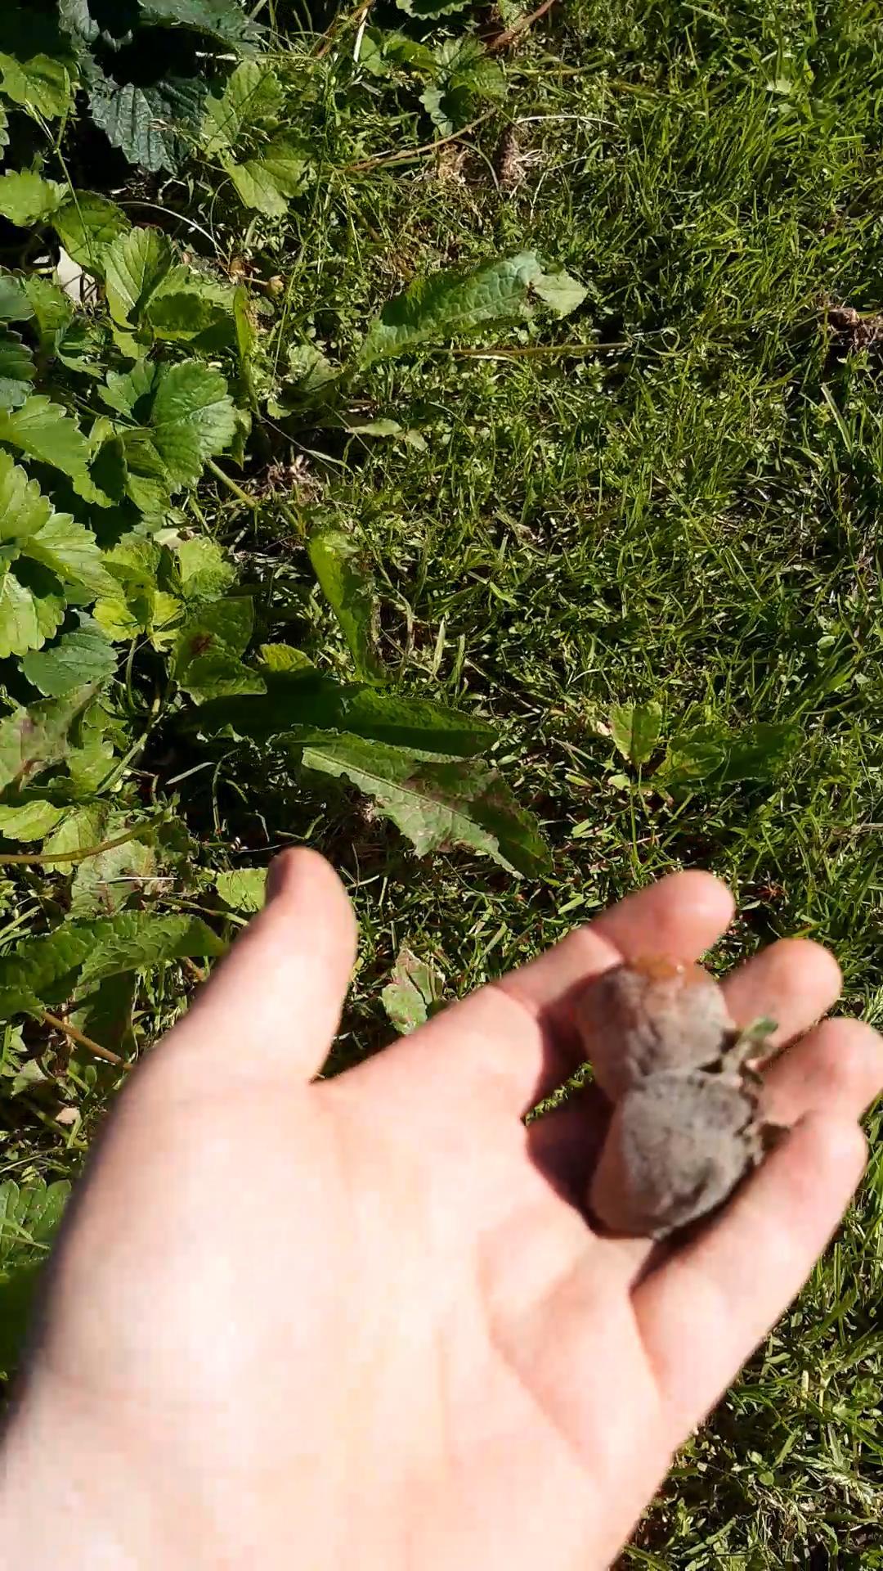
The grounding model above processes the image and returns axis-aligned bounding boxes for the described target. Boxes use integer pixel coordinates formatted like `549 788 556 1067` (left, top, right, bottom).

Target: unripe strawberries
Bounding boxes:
570 939 728 1087
578 1064 778 1244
